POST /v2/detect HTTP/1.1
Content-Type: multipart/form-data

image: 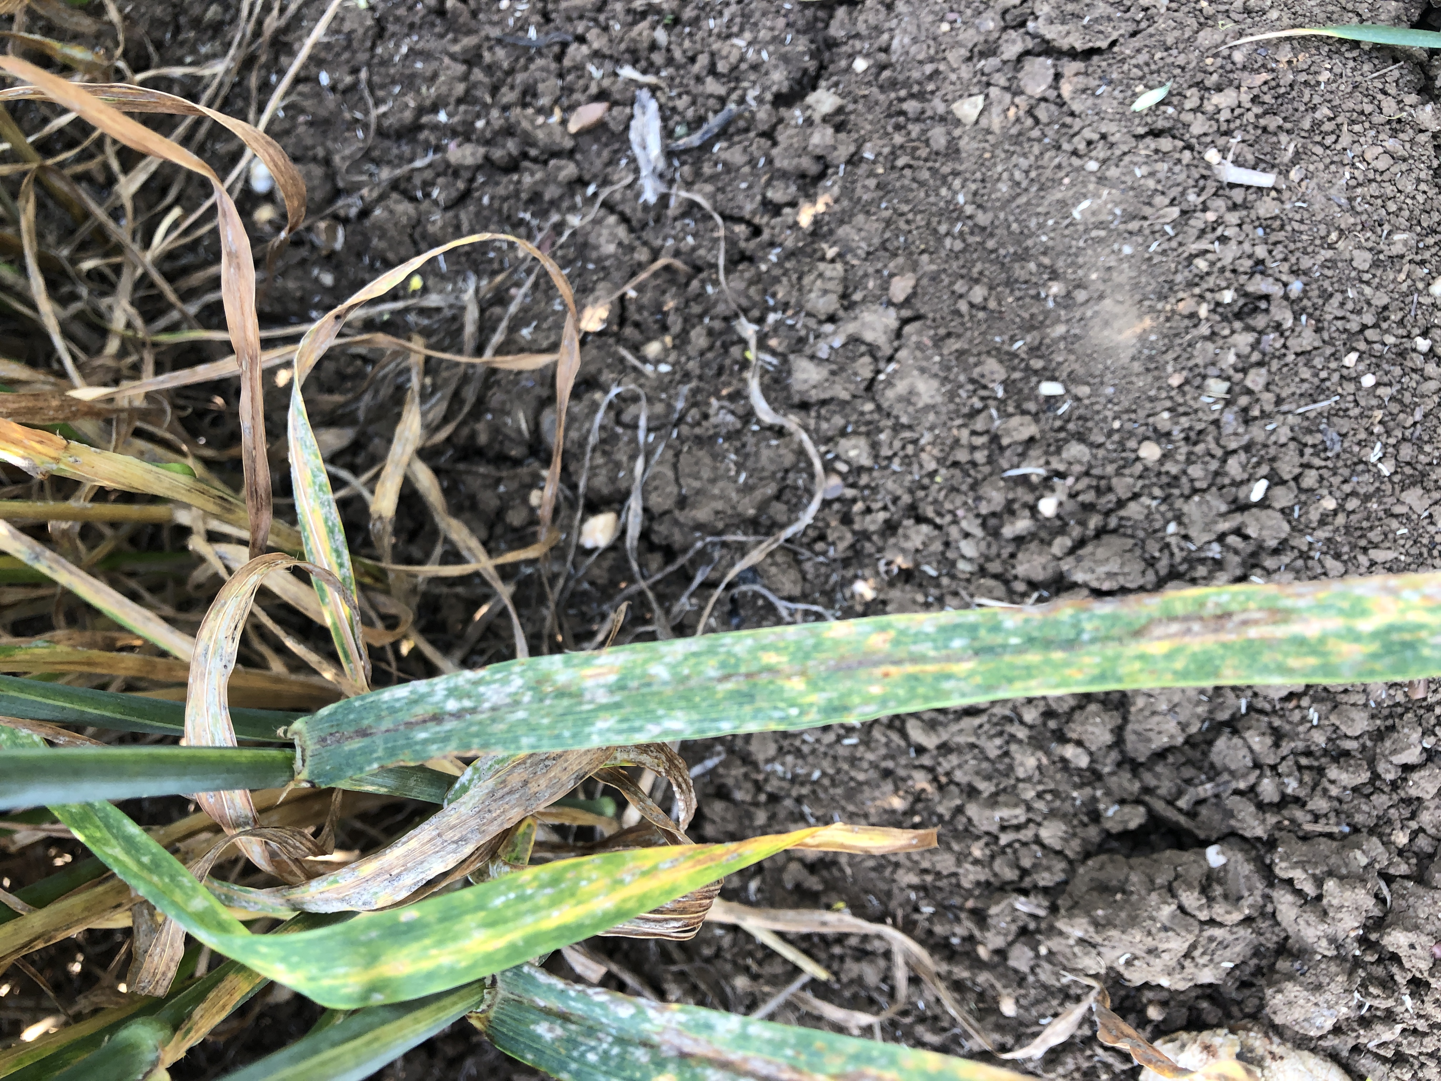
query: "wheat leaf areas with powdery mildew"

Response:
[483,1006,990,1081]
[303,730,612,916]
[325,533,1438,785]
[293,324,376,612]
[185,612,271,837]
